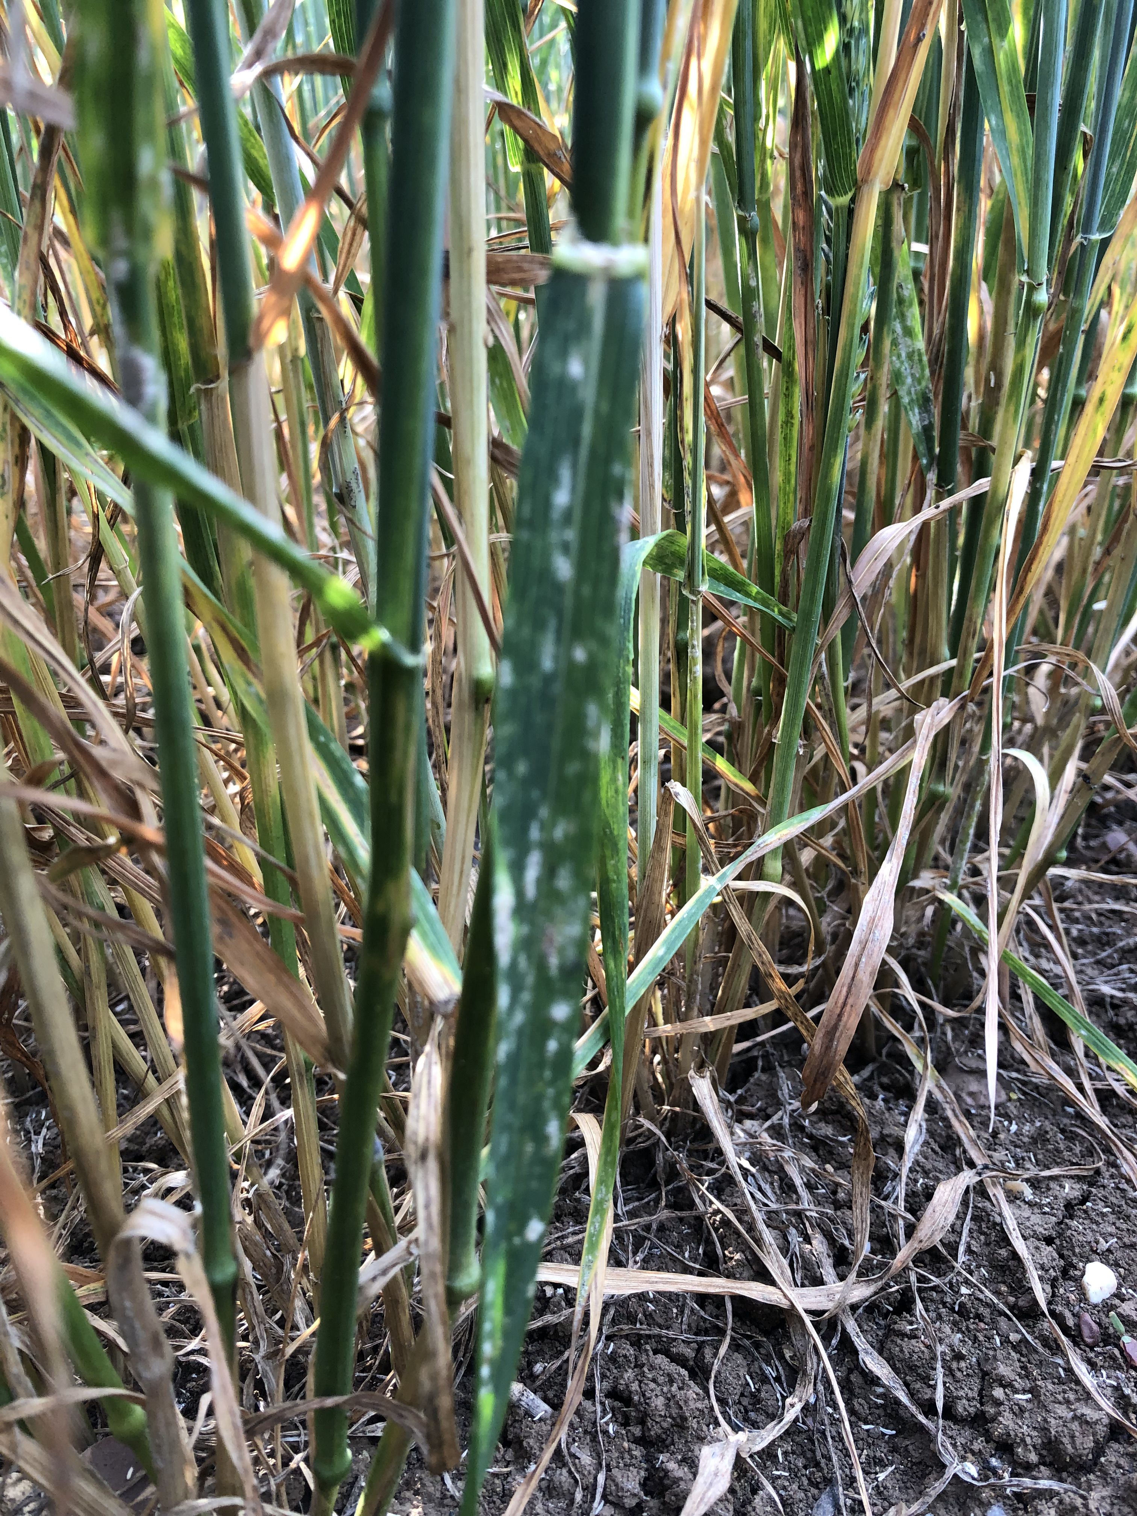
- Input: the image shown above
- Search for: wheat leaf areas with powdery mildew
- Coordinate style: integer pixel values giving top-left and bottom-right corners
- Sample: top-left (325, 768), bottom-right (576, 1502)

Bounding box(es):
top-left (884, 264), bottom-right (942, 450)
top-left (92, 212), bottom-right (180, 421)
top-left (727, 222), bottom-right (783, 356)
top-left (491, 291), bottom-right (664, 1404)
